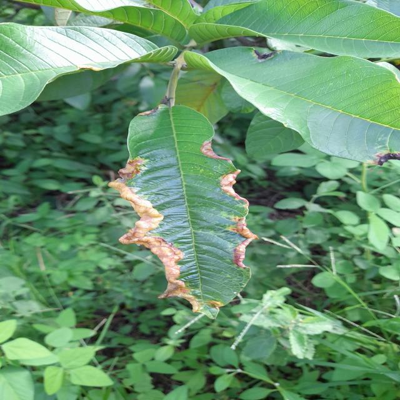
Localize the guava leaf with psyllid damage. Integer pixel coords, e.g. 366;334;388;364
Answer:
100;101;266;328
